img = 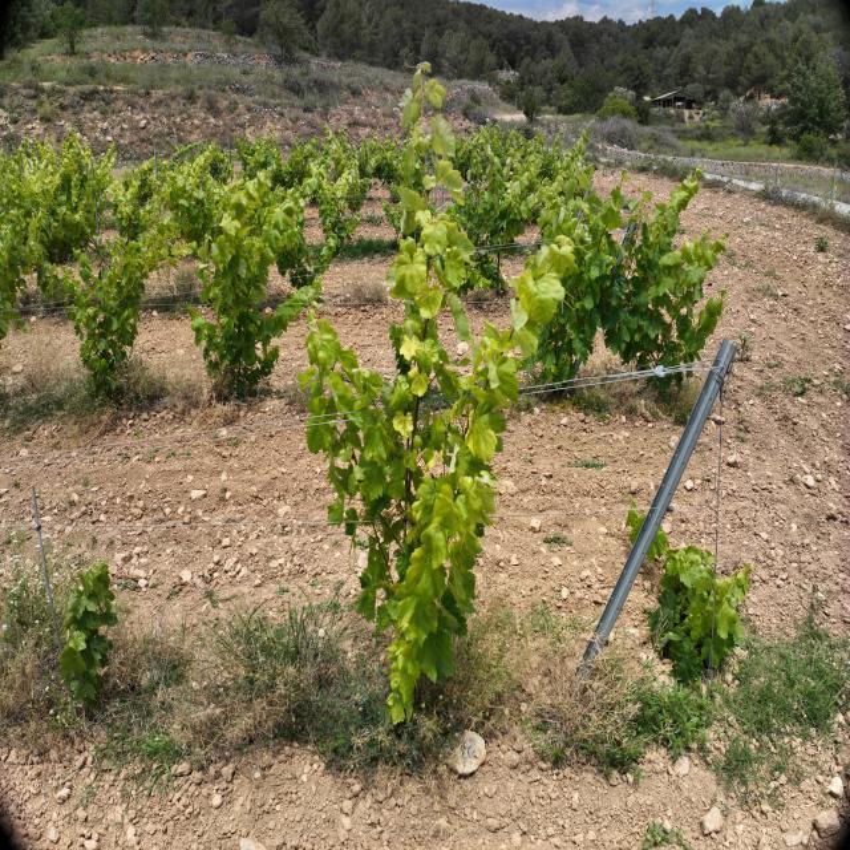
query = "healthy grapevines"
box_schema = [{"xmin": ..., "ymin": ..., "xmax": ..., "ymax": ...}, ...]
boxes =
[
  {"xmin": 50, "ymin": 555, "xmax": 127, "ymax": 738},
  {"xmin": 638, "ymin": 530, "xmax": 756, "ymax": 715}
]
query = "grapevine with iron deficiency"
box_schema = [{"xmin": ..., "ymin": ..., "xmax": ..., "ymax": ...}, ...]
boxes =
[{"xmin": 313, "ymin": 143, "xmax": 550, "ymax": 747}]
